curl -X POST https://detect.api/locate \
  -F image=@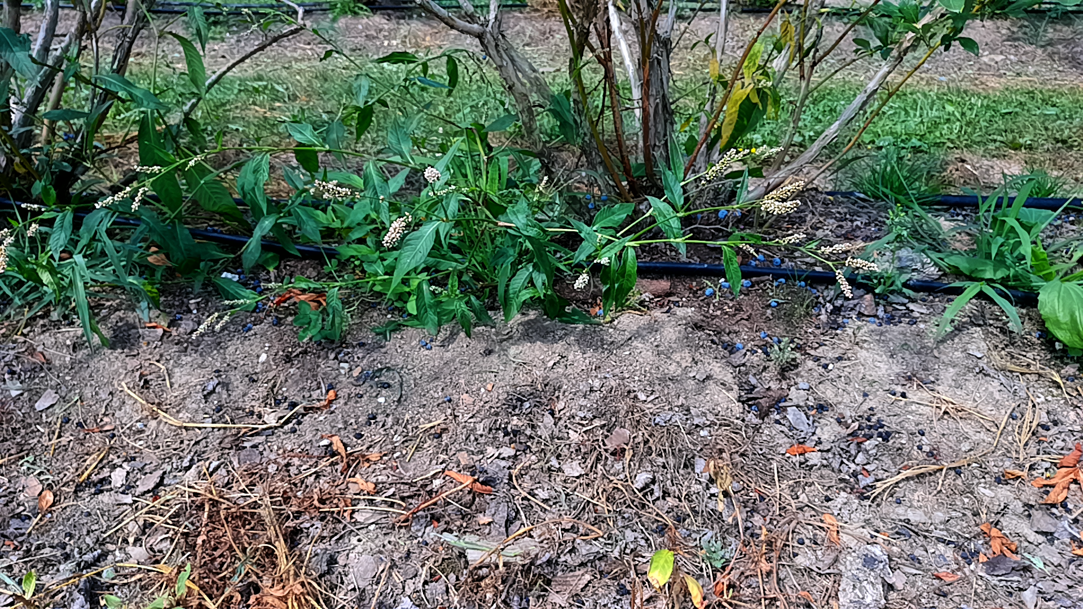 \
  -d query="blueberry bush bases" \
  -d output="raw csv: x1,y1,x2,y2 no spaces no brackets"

487,47,869,329
0,60,218,279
